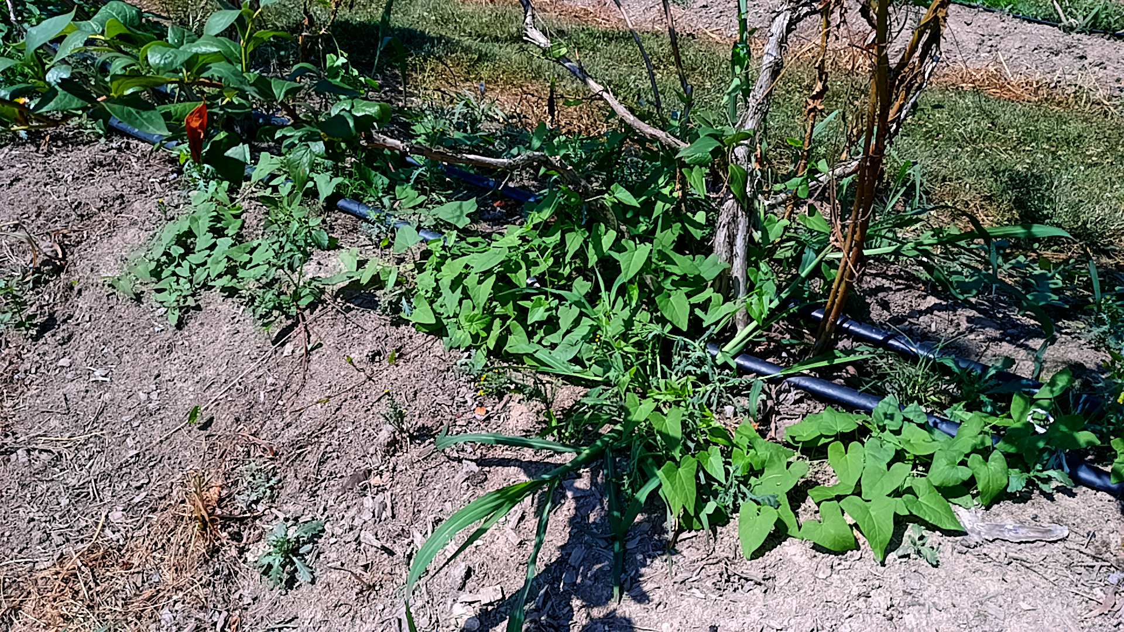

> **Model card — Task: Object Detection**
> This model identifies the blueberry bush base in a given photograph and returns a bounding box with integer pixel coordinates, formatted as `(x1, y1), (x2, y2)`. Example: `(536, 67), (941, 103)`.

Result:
(633, 180), (895, 420)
